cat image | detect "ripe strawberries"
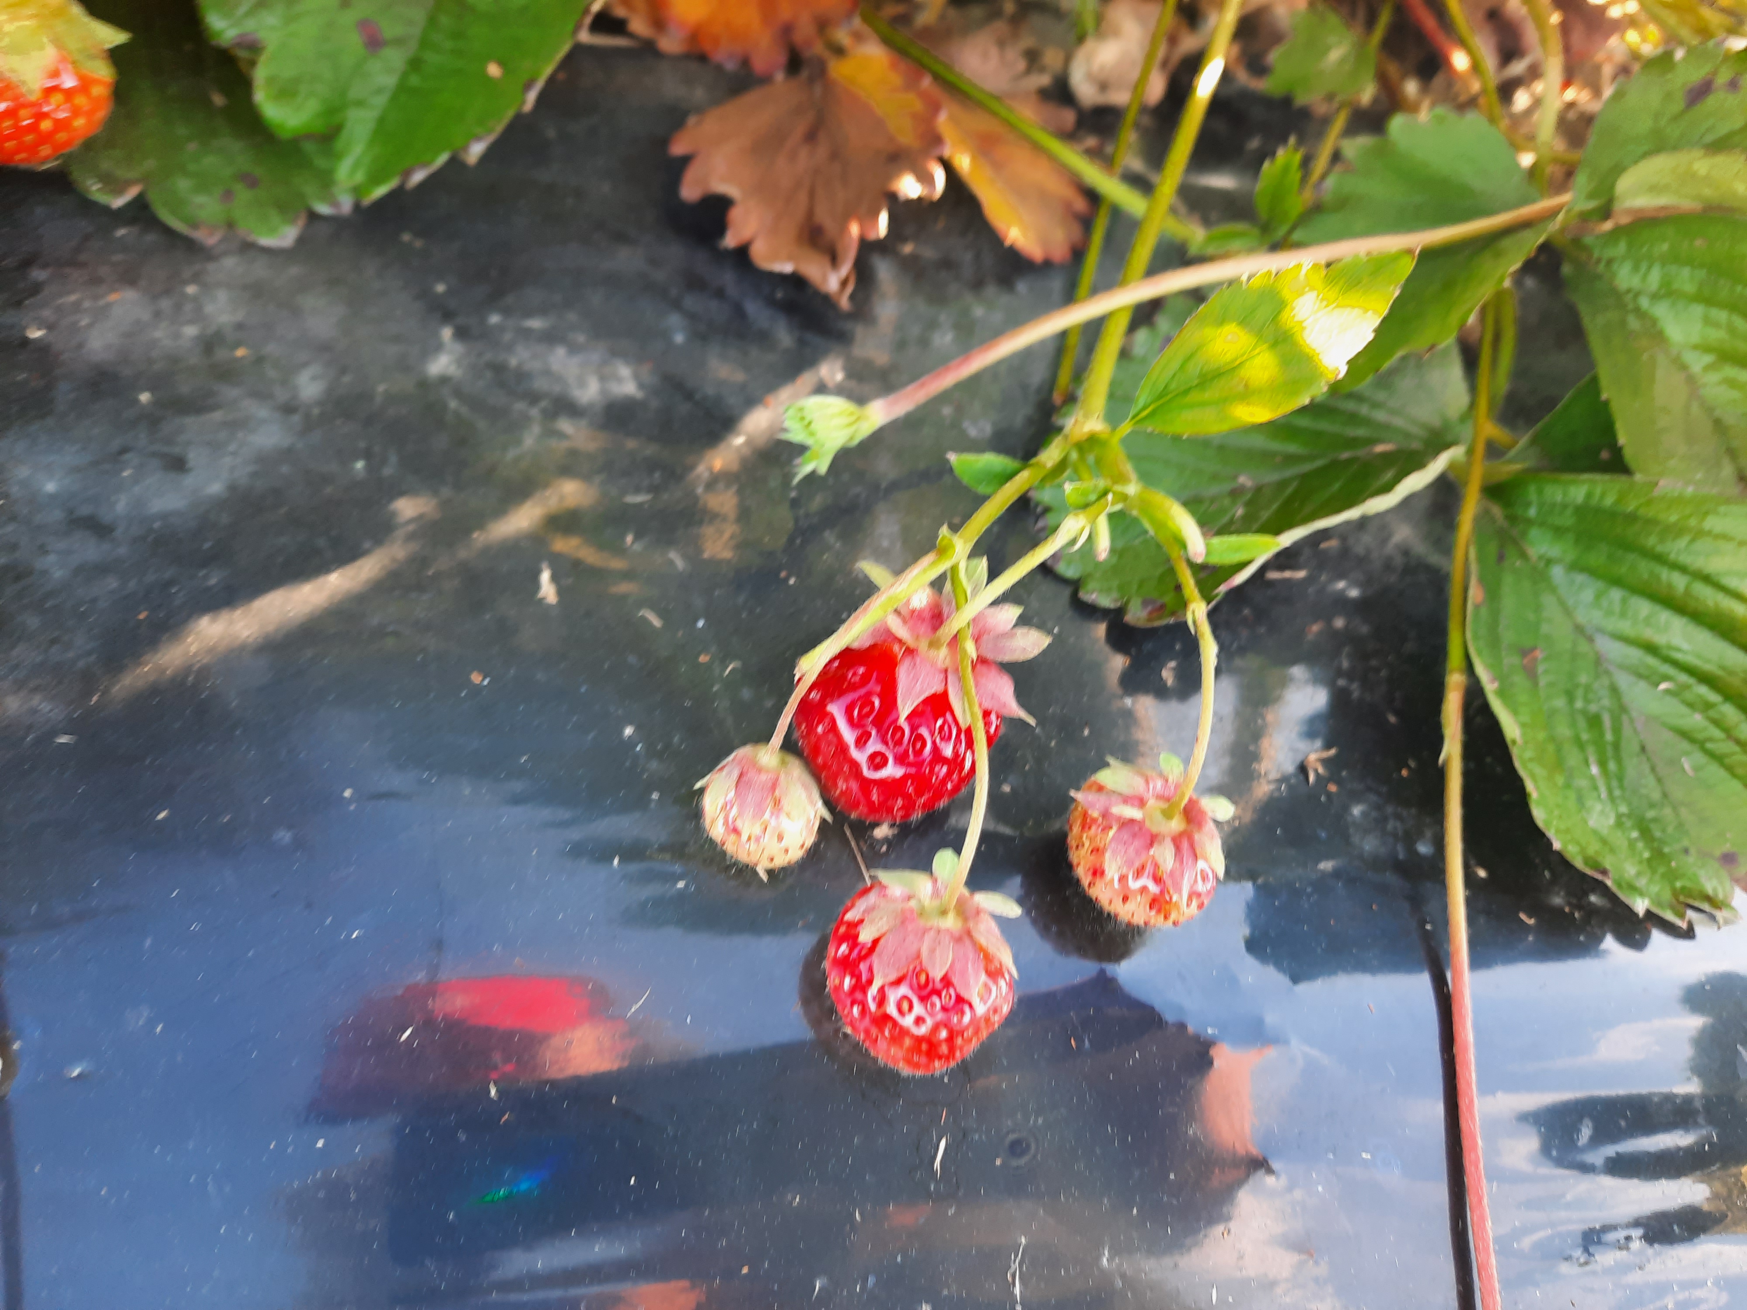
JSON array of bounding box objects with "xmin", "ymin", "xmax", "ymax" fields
[
  {"xmin": 833, "ymin": 872, "xmax": 1004, "ymax": 1064},
  {"xmin": 0, "ymin": 0, "xmax": 104, "ymax": 169},
  {"xmin": 791, "ymin": 631, "xmax": 994, "ymax": 822}
]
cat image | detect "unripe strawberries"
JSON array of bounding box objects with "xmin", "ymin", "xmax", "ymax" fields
[
  {"xmin": 698, "ymin": 760, "xmax": 843, "ymax": 872},
  {"xmin": 1065, "ymin": 766, "xmax": 1228, "ymax": 929}
]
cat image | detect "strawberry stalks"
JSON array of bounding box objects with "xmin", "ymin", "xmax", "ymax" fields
[
  {"xmin": 919, "ymin": 517, "xmax": 1073, "ymax": 660},
  {"xmin": 925, "ymin": 702, "xmax": 997, "ymax": 940},
  {"xmin": 1154, "ymin": 605, "xmax": 1215, "ymax": 829},
  {"xmin": 748, "ymin": 618, "xmax": 865, "ymax": 793}
]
